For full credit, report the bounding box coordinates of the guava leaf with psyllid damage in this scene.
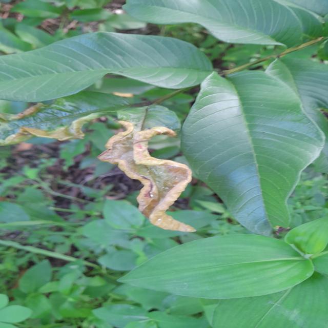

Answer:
[101,101,201,239]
